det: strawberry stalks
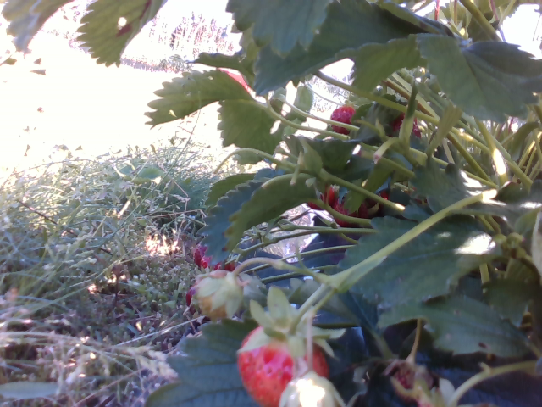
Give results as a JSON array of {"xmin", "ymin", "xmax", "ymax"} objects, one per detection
[
  {"xmin": 219, "ymin": 235, "xmax": 272, "ymax": 267},
  {"xmin": 274, "ymin": 275, "xmax": 332, "ymax": 356}
]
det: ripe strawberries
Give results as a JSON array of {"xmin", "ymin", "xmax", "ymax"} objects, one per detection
[
  {"xmin": 192, "ymin": 232, "xmax": 241, "ymax": 274},
  {"xmin": 326, "ymin": 169, "xmax": 384, "ymax": 226},
  {"xmin": 326, "ymin": 91, "xmax": 376, "ymax": 144},
  {"xmin": 236, "ymin": 317, "xmax": 334, "ymax": 407}
]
